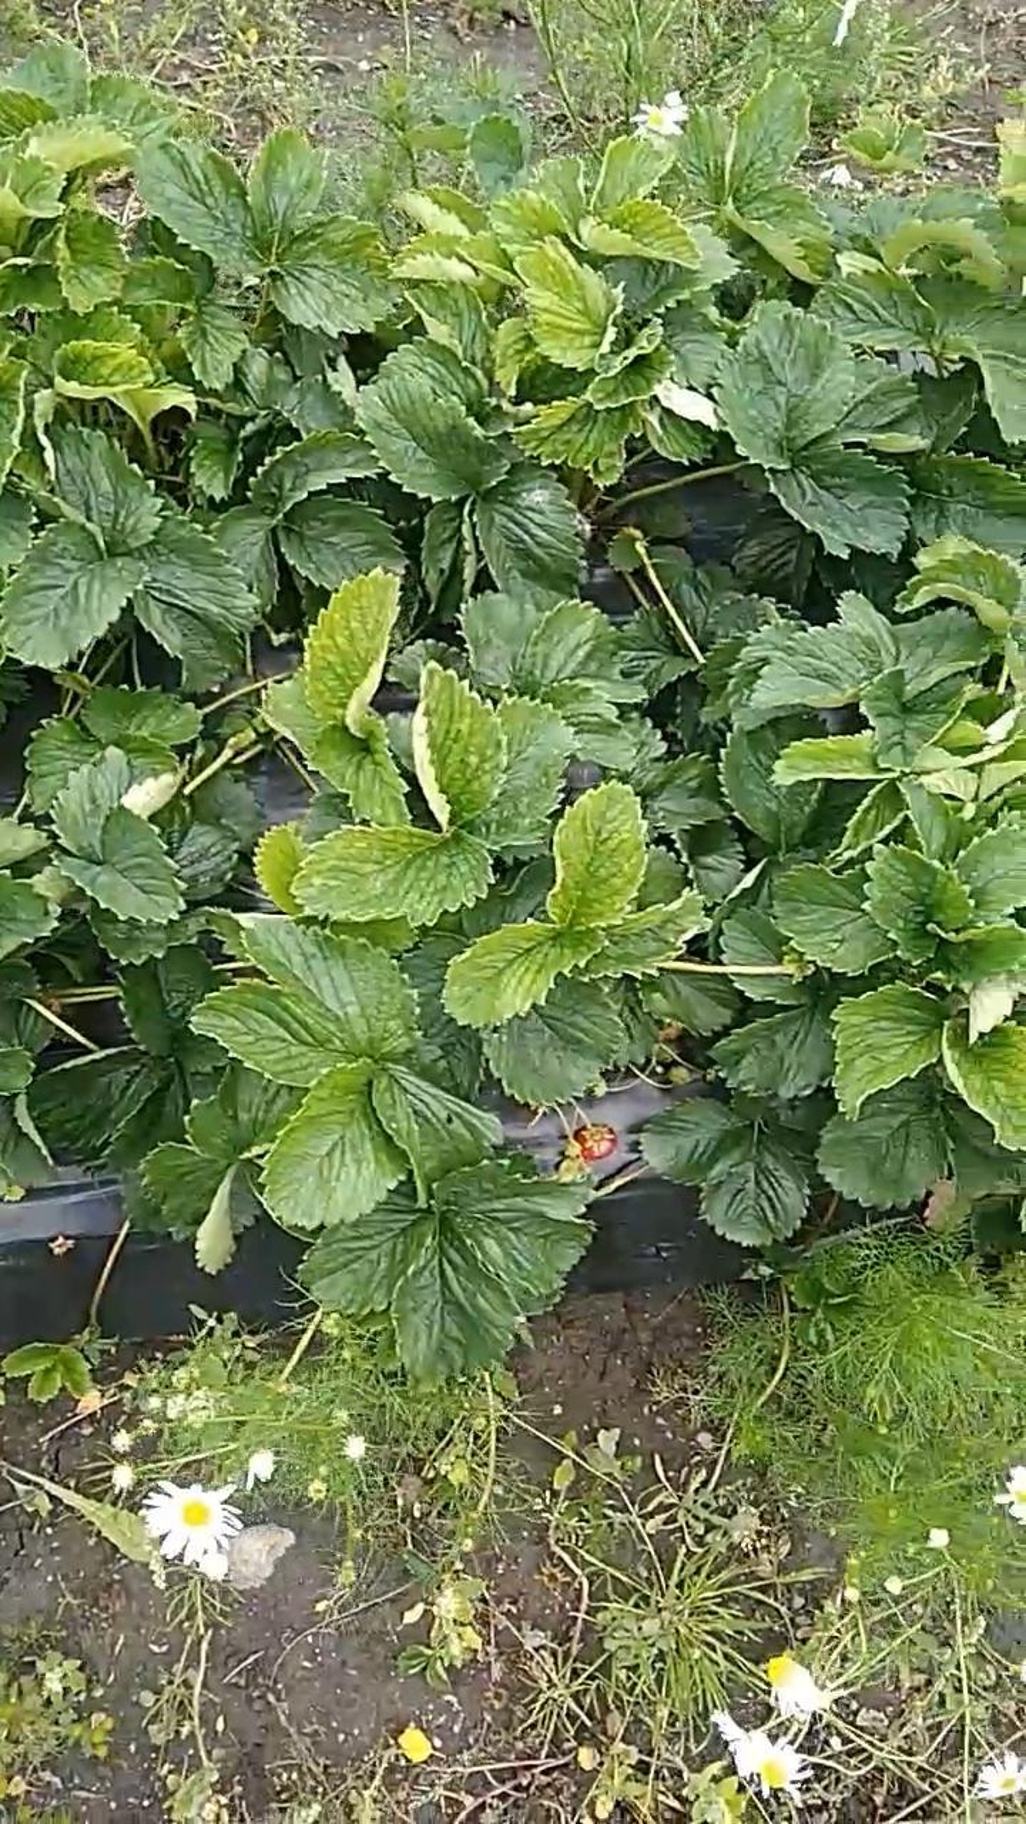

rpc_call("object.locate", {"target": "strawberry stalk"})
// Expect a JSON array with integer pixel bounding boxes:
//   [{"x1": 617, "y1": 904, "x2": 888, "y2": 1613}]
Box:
[{"x1": 569, "y1": 1099, "x2": 603, "y2": 1143}]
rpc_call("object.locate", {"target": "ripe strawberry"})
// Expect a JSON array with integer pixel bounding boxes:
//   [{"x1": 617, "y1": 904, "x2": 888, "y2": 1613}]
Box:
[{"x1": 574, "y1": 1123, "x2": 618, "y2": 1161}]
